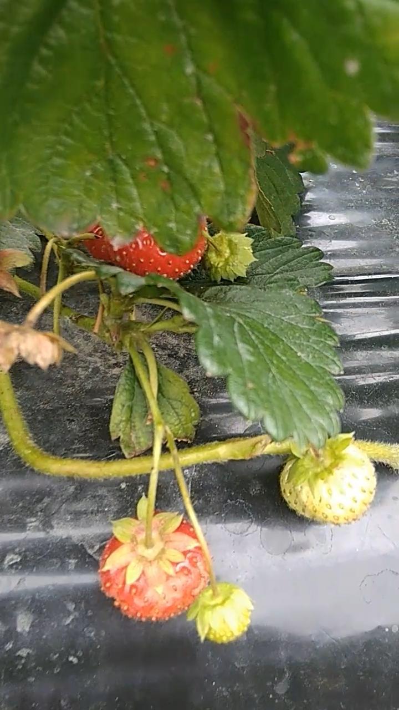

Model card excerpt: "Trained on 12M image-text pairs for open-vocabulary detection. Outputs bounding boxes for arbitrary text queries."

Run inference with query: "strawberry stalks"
[193,533,229,600]
[122,433,185,569]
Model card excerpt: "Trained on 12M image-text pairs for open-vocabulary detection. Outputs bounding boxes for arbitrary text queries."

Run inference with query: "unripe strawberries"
[197,585,251,645]
[282,432,380,531]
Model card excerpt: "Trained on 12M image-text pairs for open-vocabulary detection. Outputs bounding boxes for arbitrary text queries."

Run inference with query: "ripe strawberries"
[98,513,208,625]
[74,149,213,290]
